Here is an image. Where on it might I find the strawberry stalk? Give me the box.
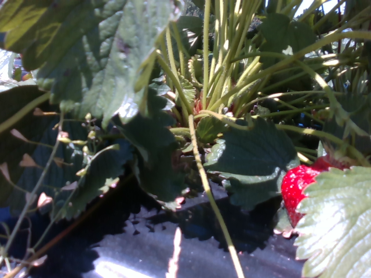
[322,120,354,175]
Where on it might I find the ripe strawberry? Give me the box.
[285,155,357,228]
